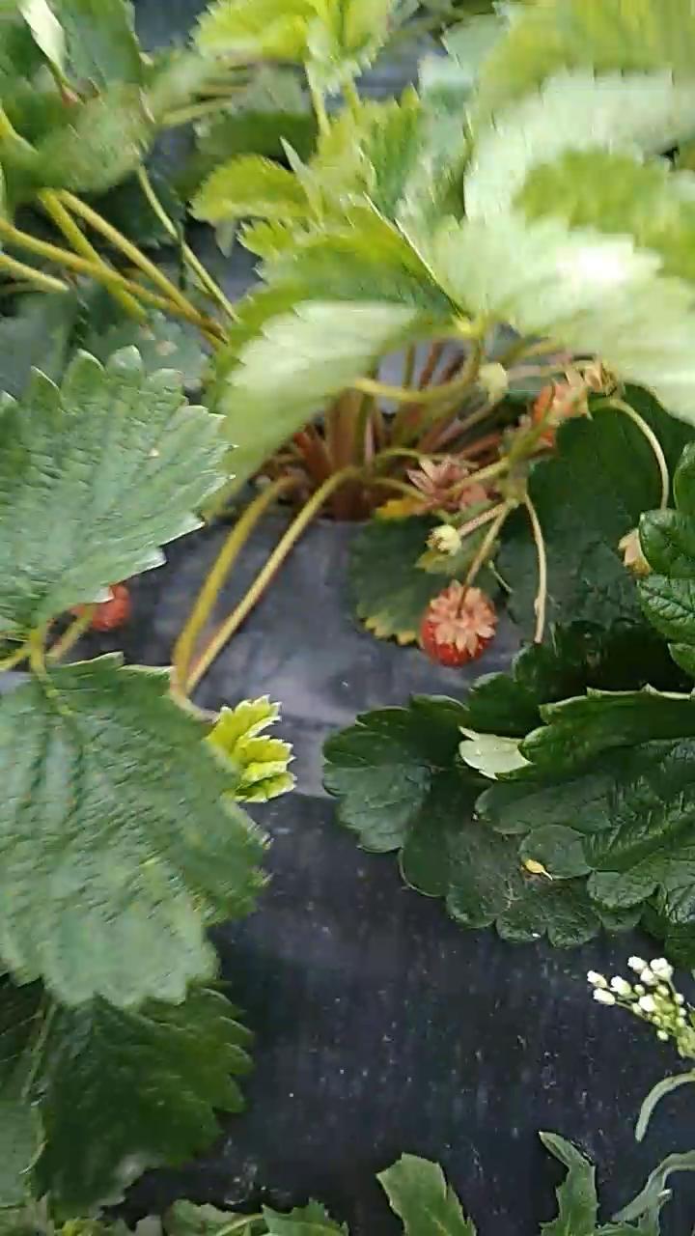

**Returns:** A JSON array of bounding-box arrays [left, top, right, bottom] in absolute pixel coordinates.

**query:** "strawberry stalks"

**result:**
[[443, 529, 500, 638], [47, 613, 99, 662], [632, 436, 683, 543]]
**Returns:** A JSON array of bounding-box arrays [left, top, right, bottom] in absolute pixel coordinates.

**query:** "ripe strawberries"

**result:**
[[53, 566, 137, 641], [417, 585, 505, 666]]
